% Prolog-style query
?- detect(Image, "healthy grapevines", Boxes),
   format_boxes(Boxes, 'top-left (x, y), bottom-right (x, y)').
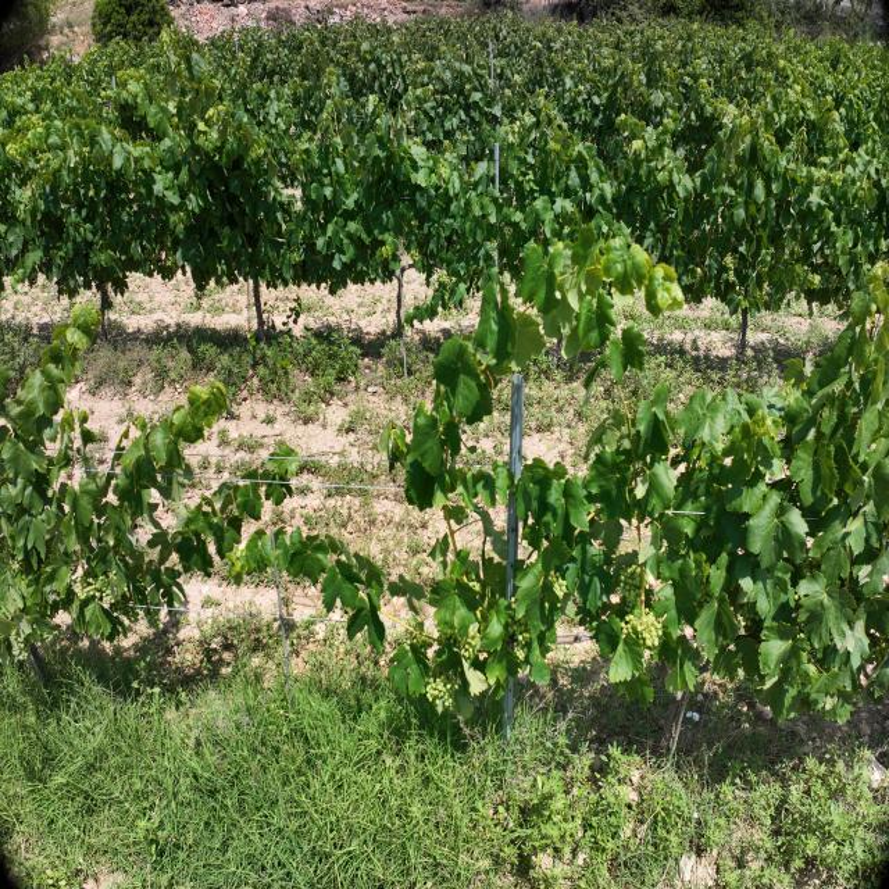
top-left (339, 279), bottom-right (889, 804)
top-left (0, 303), bottom-right (265, 749)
